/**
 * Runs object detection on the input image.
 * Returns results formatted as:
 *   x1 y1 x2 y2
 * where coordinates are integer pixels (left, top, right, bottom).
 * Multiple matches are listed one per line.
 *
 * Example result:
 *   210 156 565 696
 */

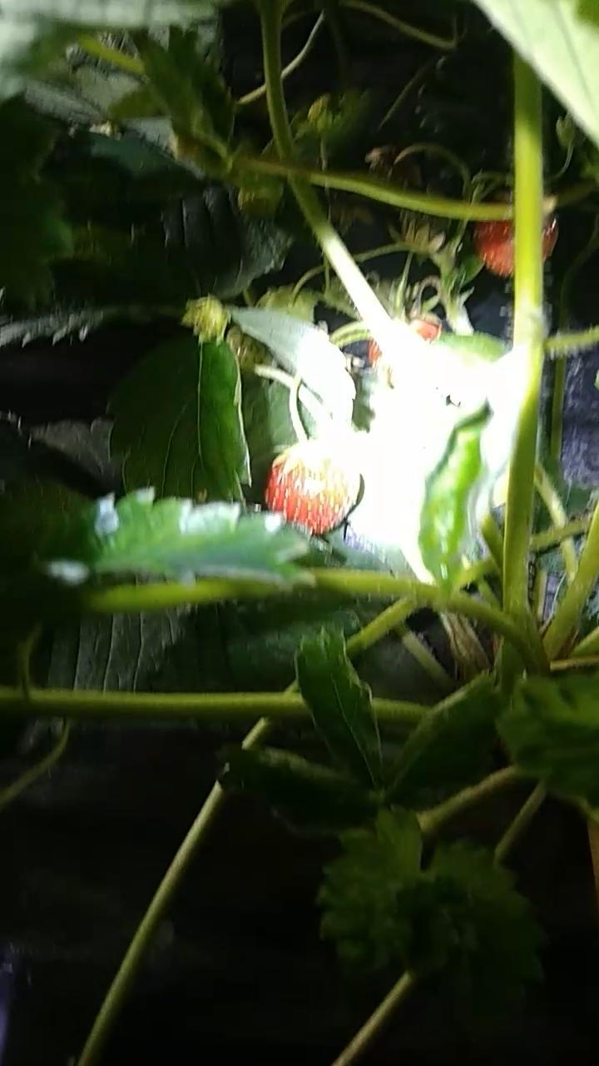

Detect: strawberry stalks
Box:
288 374 325 461
380 251 431 341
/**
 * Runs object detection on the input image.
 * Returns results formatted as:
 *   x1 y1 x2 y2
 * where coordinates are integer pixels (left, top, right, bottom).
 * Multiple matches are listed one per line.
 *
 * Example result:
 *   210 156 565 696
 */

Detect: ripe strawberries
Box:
260 445 366 535
472 187 564 280
360 303 467 390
